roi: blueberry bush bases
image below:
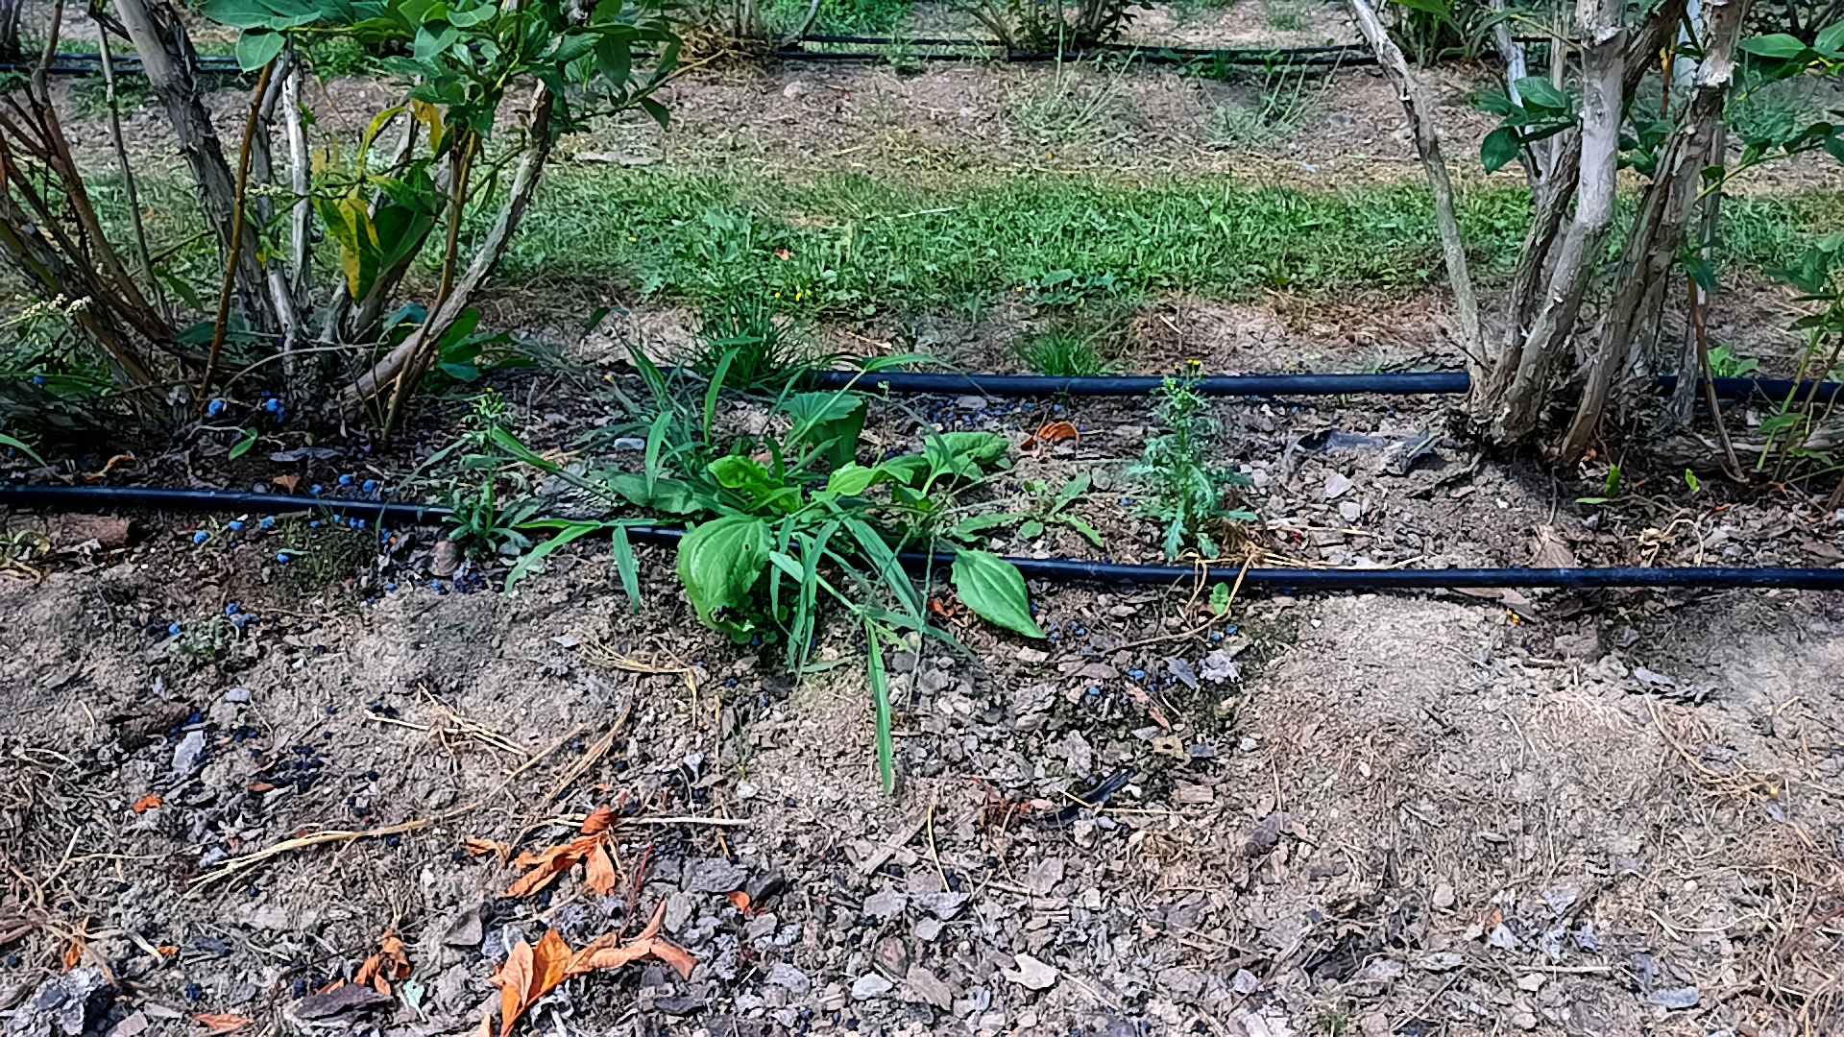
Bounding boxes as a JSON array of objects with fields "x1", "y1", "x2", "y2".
[
  {"x1": 1388, "y1": 156, "x2": 1800, "y2": 549},
  {"x1": 663, "y1": 12, "x2": 822, "y2": 71},
  {"x1": 979, "y1": 3, "x2": 1129, "y2": 79},
  {"x1": 15, "y1": 183, "x2": 519, "y2": 531}
]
